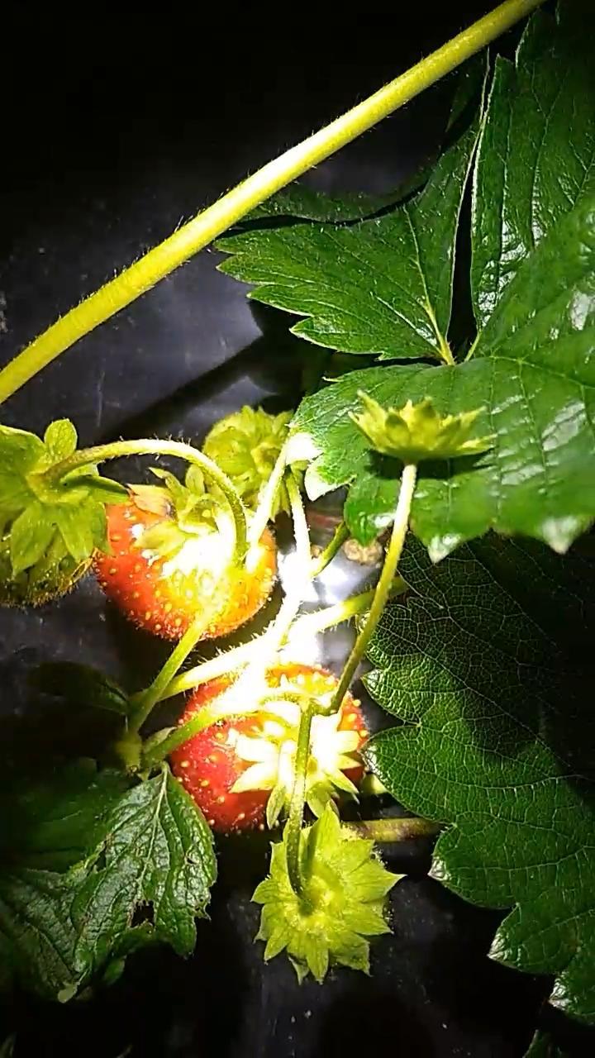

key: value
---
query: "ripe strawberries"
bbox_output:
[106,484,280,636]
[177,662,362,826]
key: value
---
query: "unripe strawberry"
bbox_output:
[199,398,323,513]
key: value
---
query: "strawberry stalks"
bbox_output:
[160,429,255,571]
[261,618,398,771]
